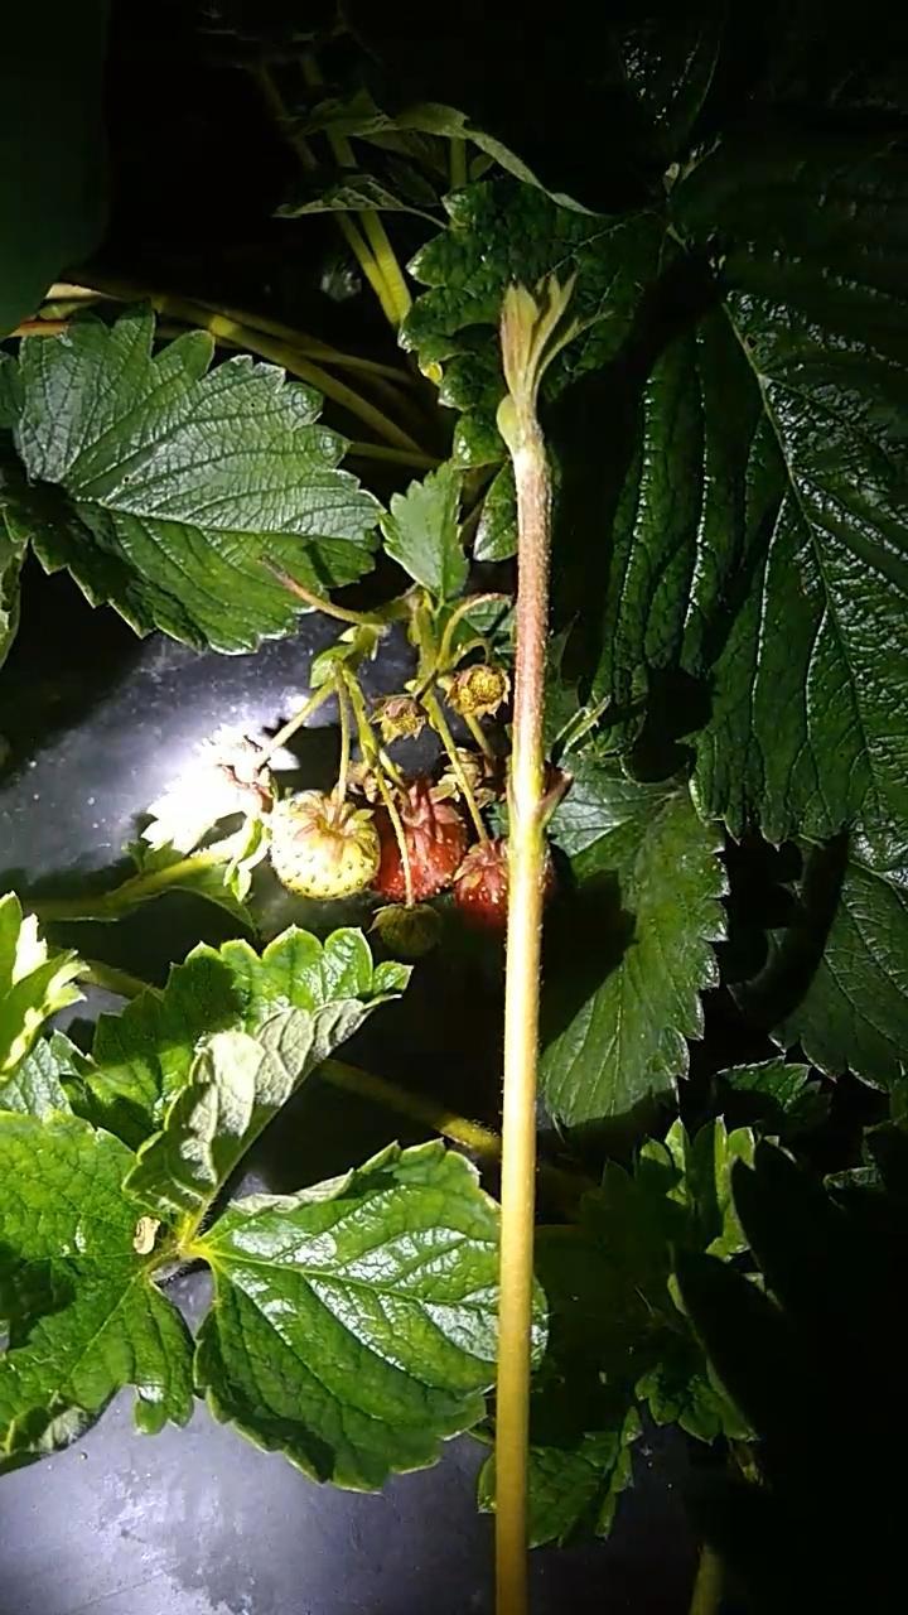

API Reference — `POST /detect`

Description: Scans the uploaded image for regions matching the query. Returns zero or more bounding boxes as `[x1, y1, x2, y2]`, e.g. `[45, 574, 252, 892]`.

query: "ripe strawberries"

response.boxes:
[378, 807, 465, 896]
[462, 841, 551, 927]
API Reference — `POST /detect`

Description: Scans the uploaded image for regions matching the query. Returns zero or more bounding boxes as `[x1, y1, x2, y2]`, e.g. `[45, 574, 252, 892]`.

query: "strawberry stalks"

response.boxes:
[394, 785, 413, 917]
[457, 773, 489, 863]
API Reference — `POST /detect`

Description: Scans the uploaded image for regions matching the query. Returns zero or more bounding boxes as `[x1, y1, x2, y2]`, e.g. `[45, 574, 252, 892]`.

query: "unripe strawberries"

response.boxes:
[265, 789, 378, 898]
[373, 904, 444, 957]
